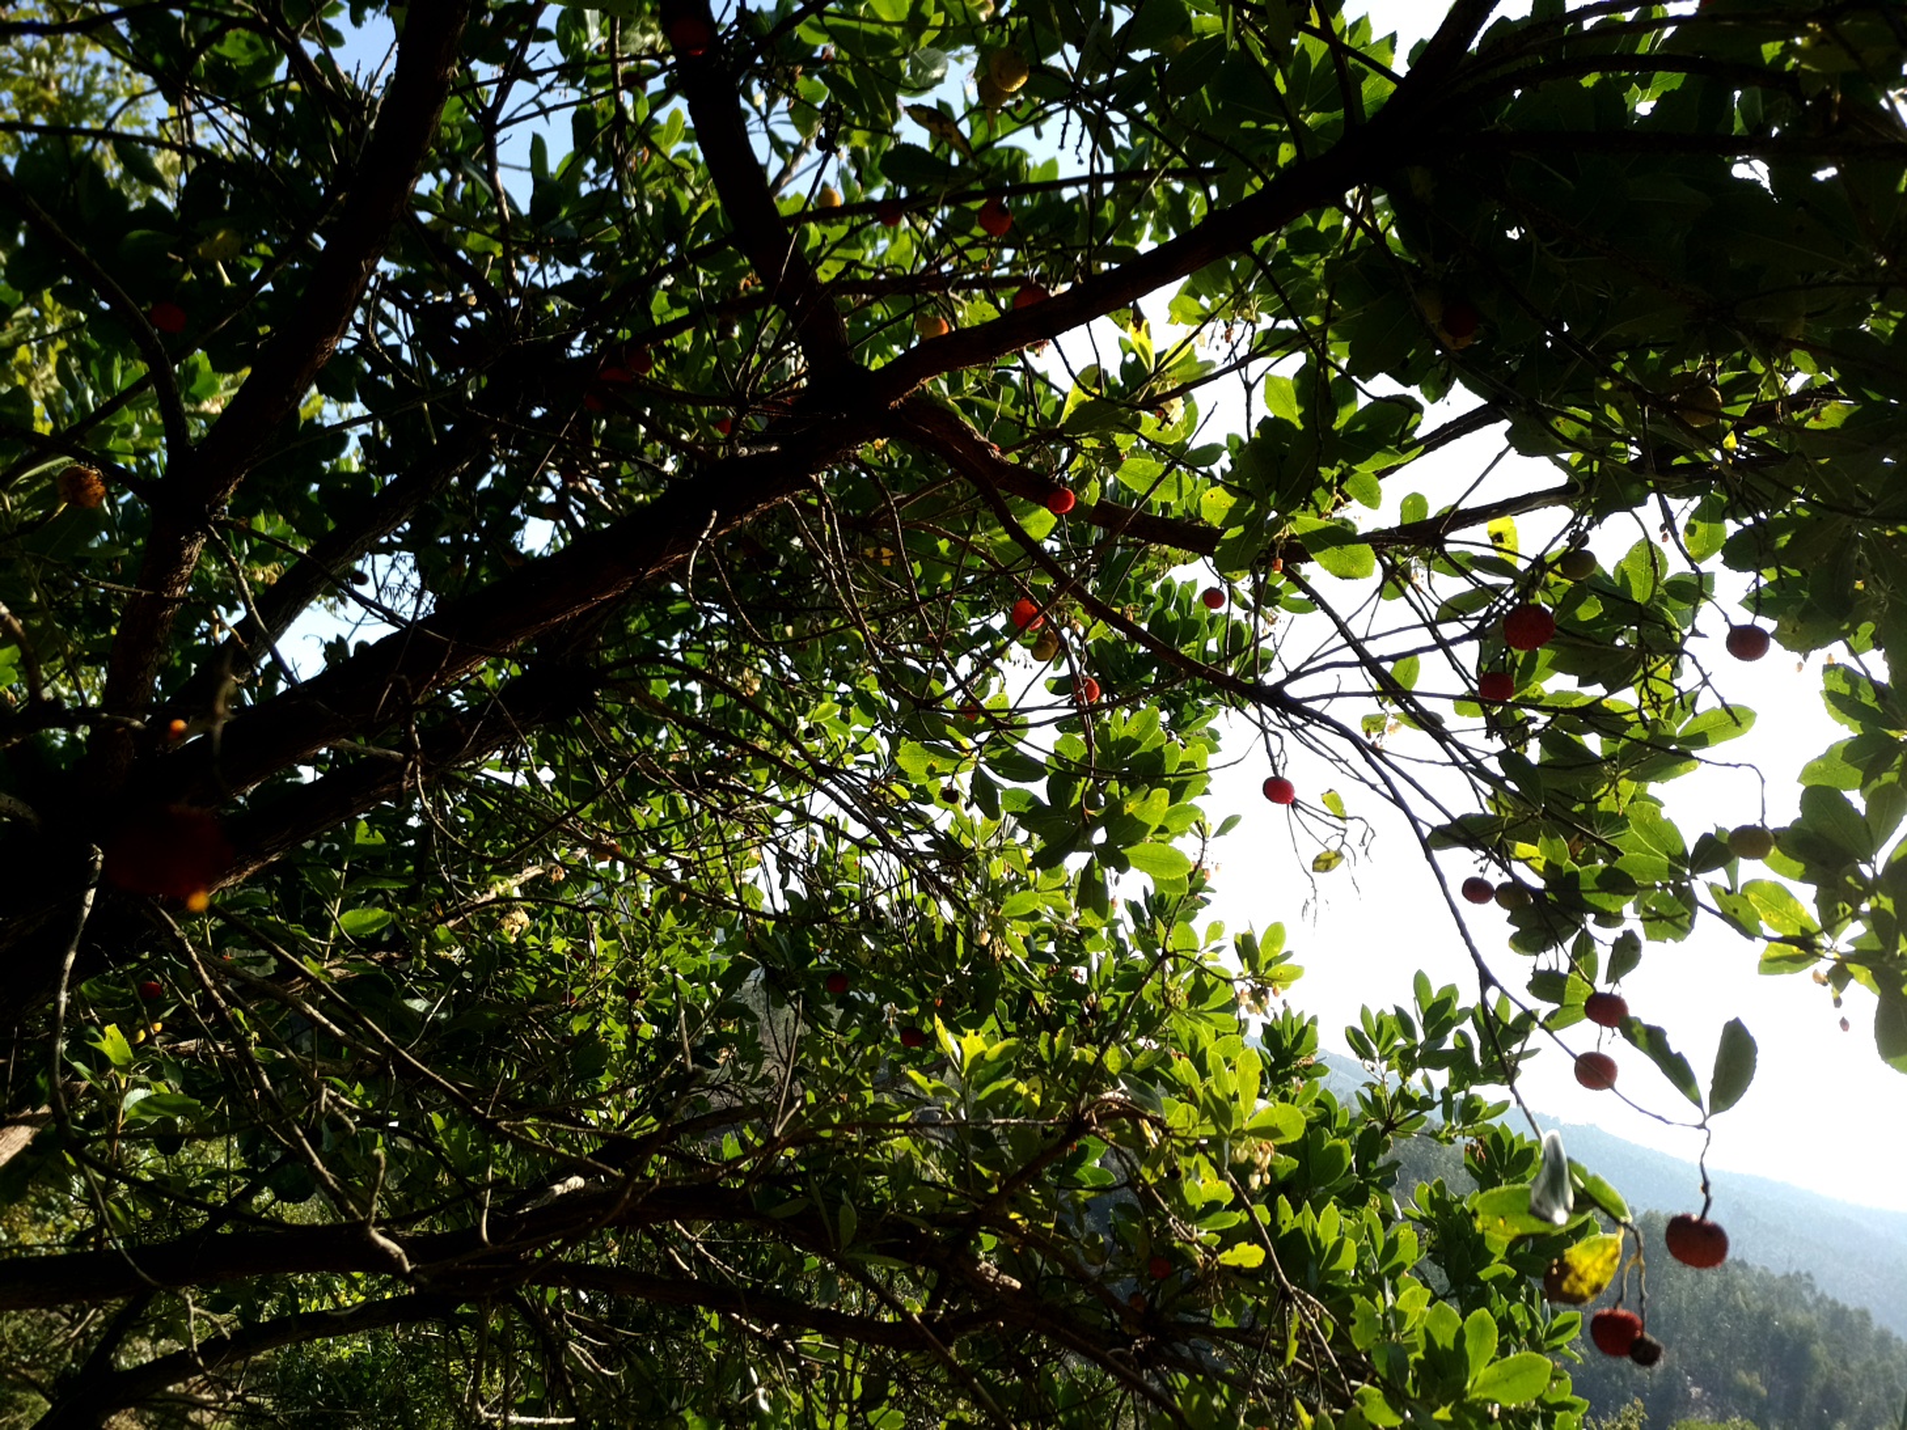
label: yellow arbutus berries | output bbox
[1030,641,1055,661]
[817,187,843,209]
[920,317,950,340]
[57,464,106,508]
[989,44,1029,92]
[1036,627,1061,648]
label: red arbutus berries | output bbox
[134,981,163,1005]
[1012,596,1046,629]
[1591,1306,1644,1362]
[958,702,977,718]
[1047,488,1077,514]
[1012,282,1048,306]
[1729,620,1769,663]
[1505,601,1556,651]
[824,970,850,995]
[1576,1050,1618,1089]
[877,197,904,229]
[1581,989,1631,1029]
[896,1024,924,1048]
[1071,677,1101,702]
[1478,668,1514,700]
[1202,586,1226,609]
[1664,1210,1728,1273]
[1262,776,1296,808]
[1463,877,1495,904]
[1149,1256,1173,1279]
[978,197,1013,235]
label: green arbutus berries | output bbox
[1559,549,1599,583]
[976,73,1011,104]
[1495,882,1530,909]
[1729,822,1773,860]
[1678,384,1723,425]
